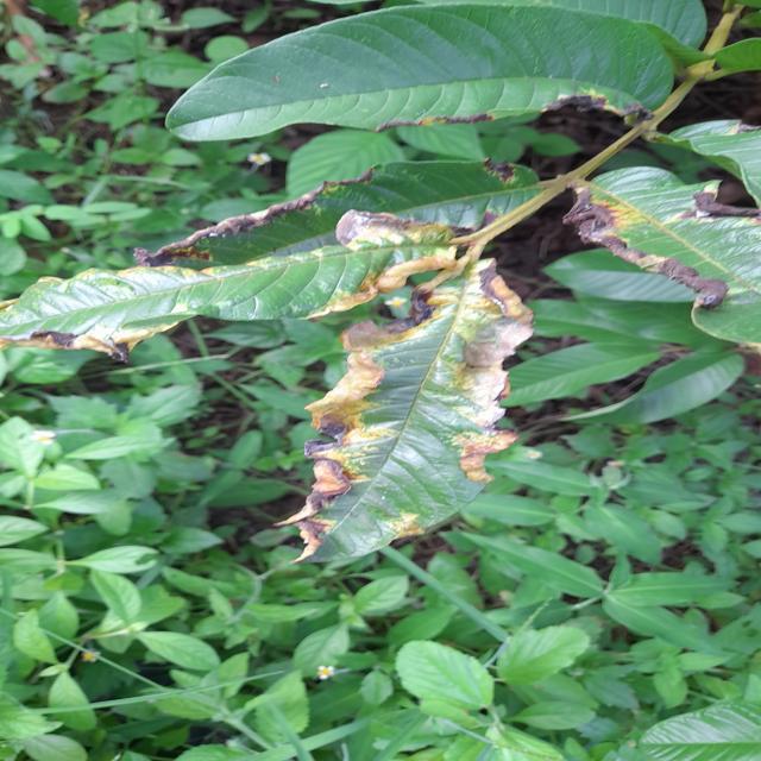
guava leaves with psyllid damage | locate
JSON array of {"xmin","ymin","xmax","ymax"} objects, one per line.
[
  {"xmin": 7, "ymin": 174, "xmax": 521, "ymax": 373},
  {"xmin": 238, "ymin": 233, "xmax": 565, "ymax": 570}
]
